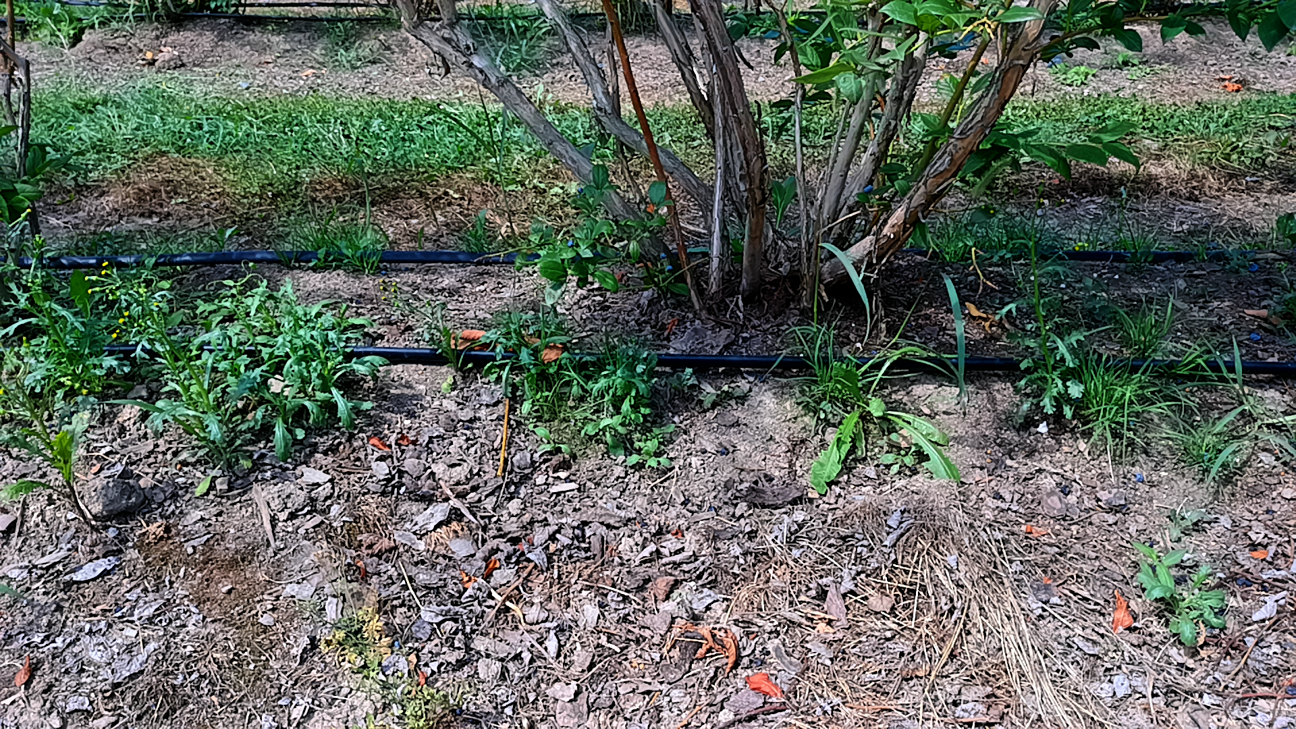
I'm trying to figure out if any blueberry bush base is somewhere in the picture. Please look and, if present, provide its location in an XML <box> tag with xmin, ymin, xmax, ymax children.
<box><xmin>599</xmin><ymin>124</ymin><xmax>988</xmax><ymax>380</ymax></box>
